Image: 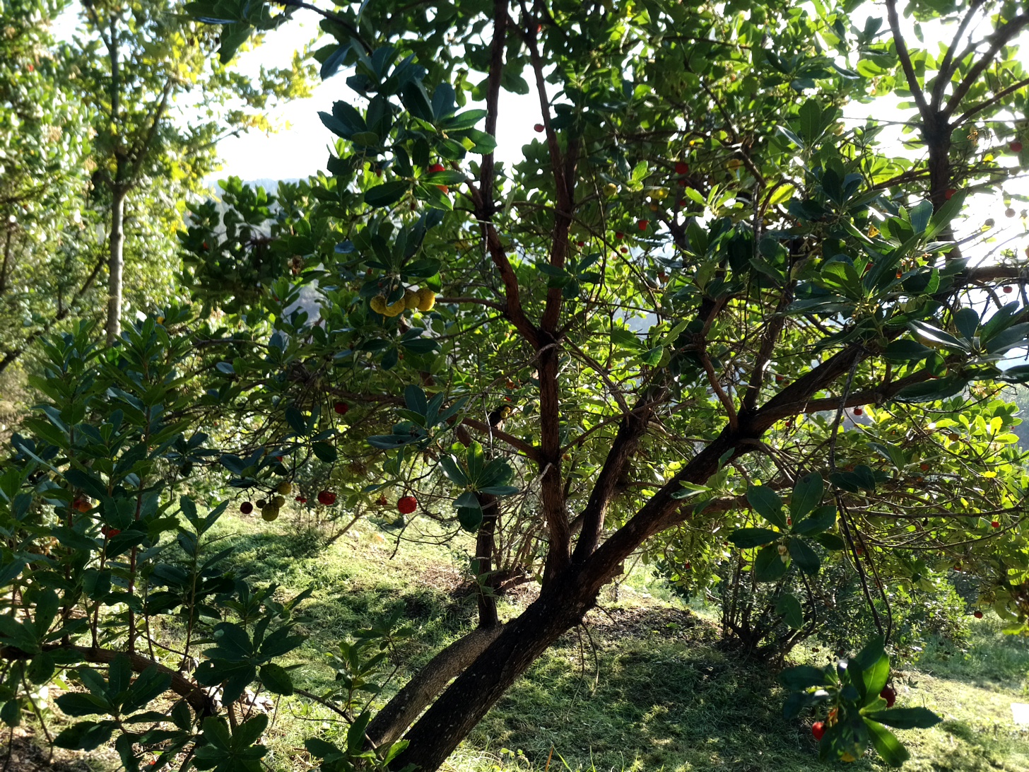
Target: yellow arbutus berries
[417,288,436,311]
[370,295,387,313]
[435,184,449,194]
[78,502,93,513]
[404,291,420,308]
[387,294,406,313]
[650,203,659,211]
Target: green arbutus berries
[262,502,279,521]
[601,182,617,197]
[272,496,285,507]
[501,411,508,418]
[504,406,511,414]
[728,159,741,169]
[278,481,292,495]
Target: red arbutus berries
[973,610,983,619]
[240,502,253,514]
[577,241,584,247]
[774,375,784,383]
[678,178,689,188]
[679,200,686,206]
[335,402,348,413]
[675,162,690,175]
[638,219,649,230]
[616,232,624,239]
[398,497,417,514]
[534,123,545,132]
[1009,141,1023,153]
[318,490,335,505]
[108,529,120,538]
[854,408,863,415]
[621,247,627,253]
[785,422,790,427]
[658,270,665,277]
[919,462,929,471]
[812,721,827,740]
[881,687,896,708]
[429,163,445,174]
[944,188,957,200]
[992,521,999,528]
